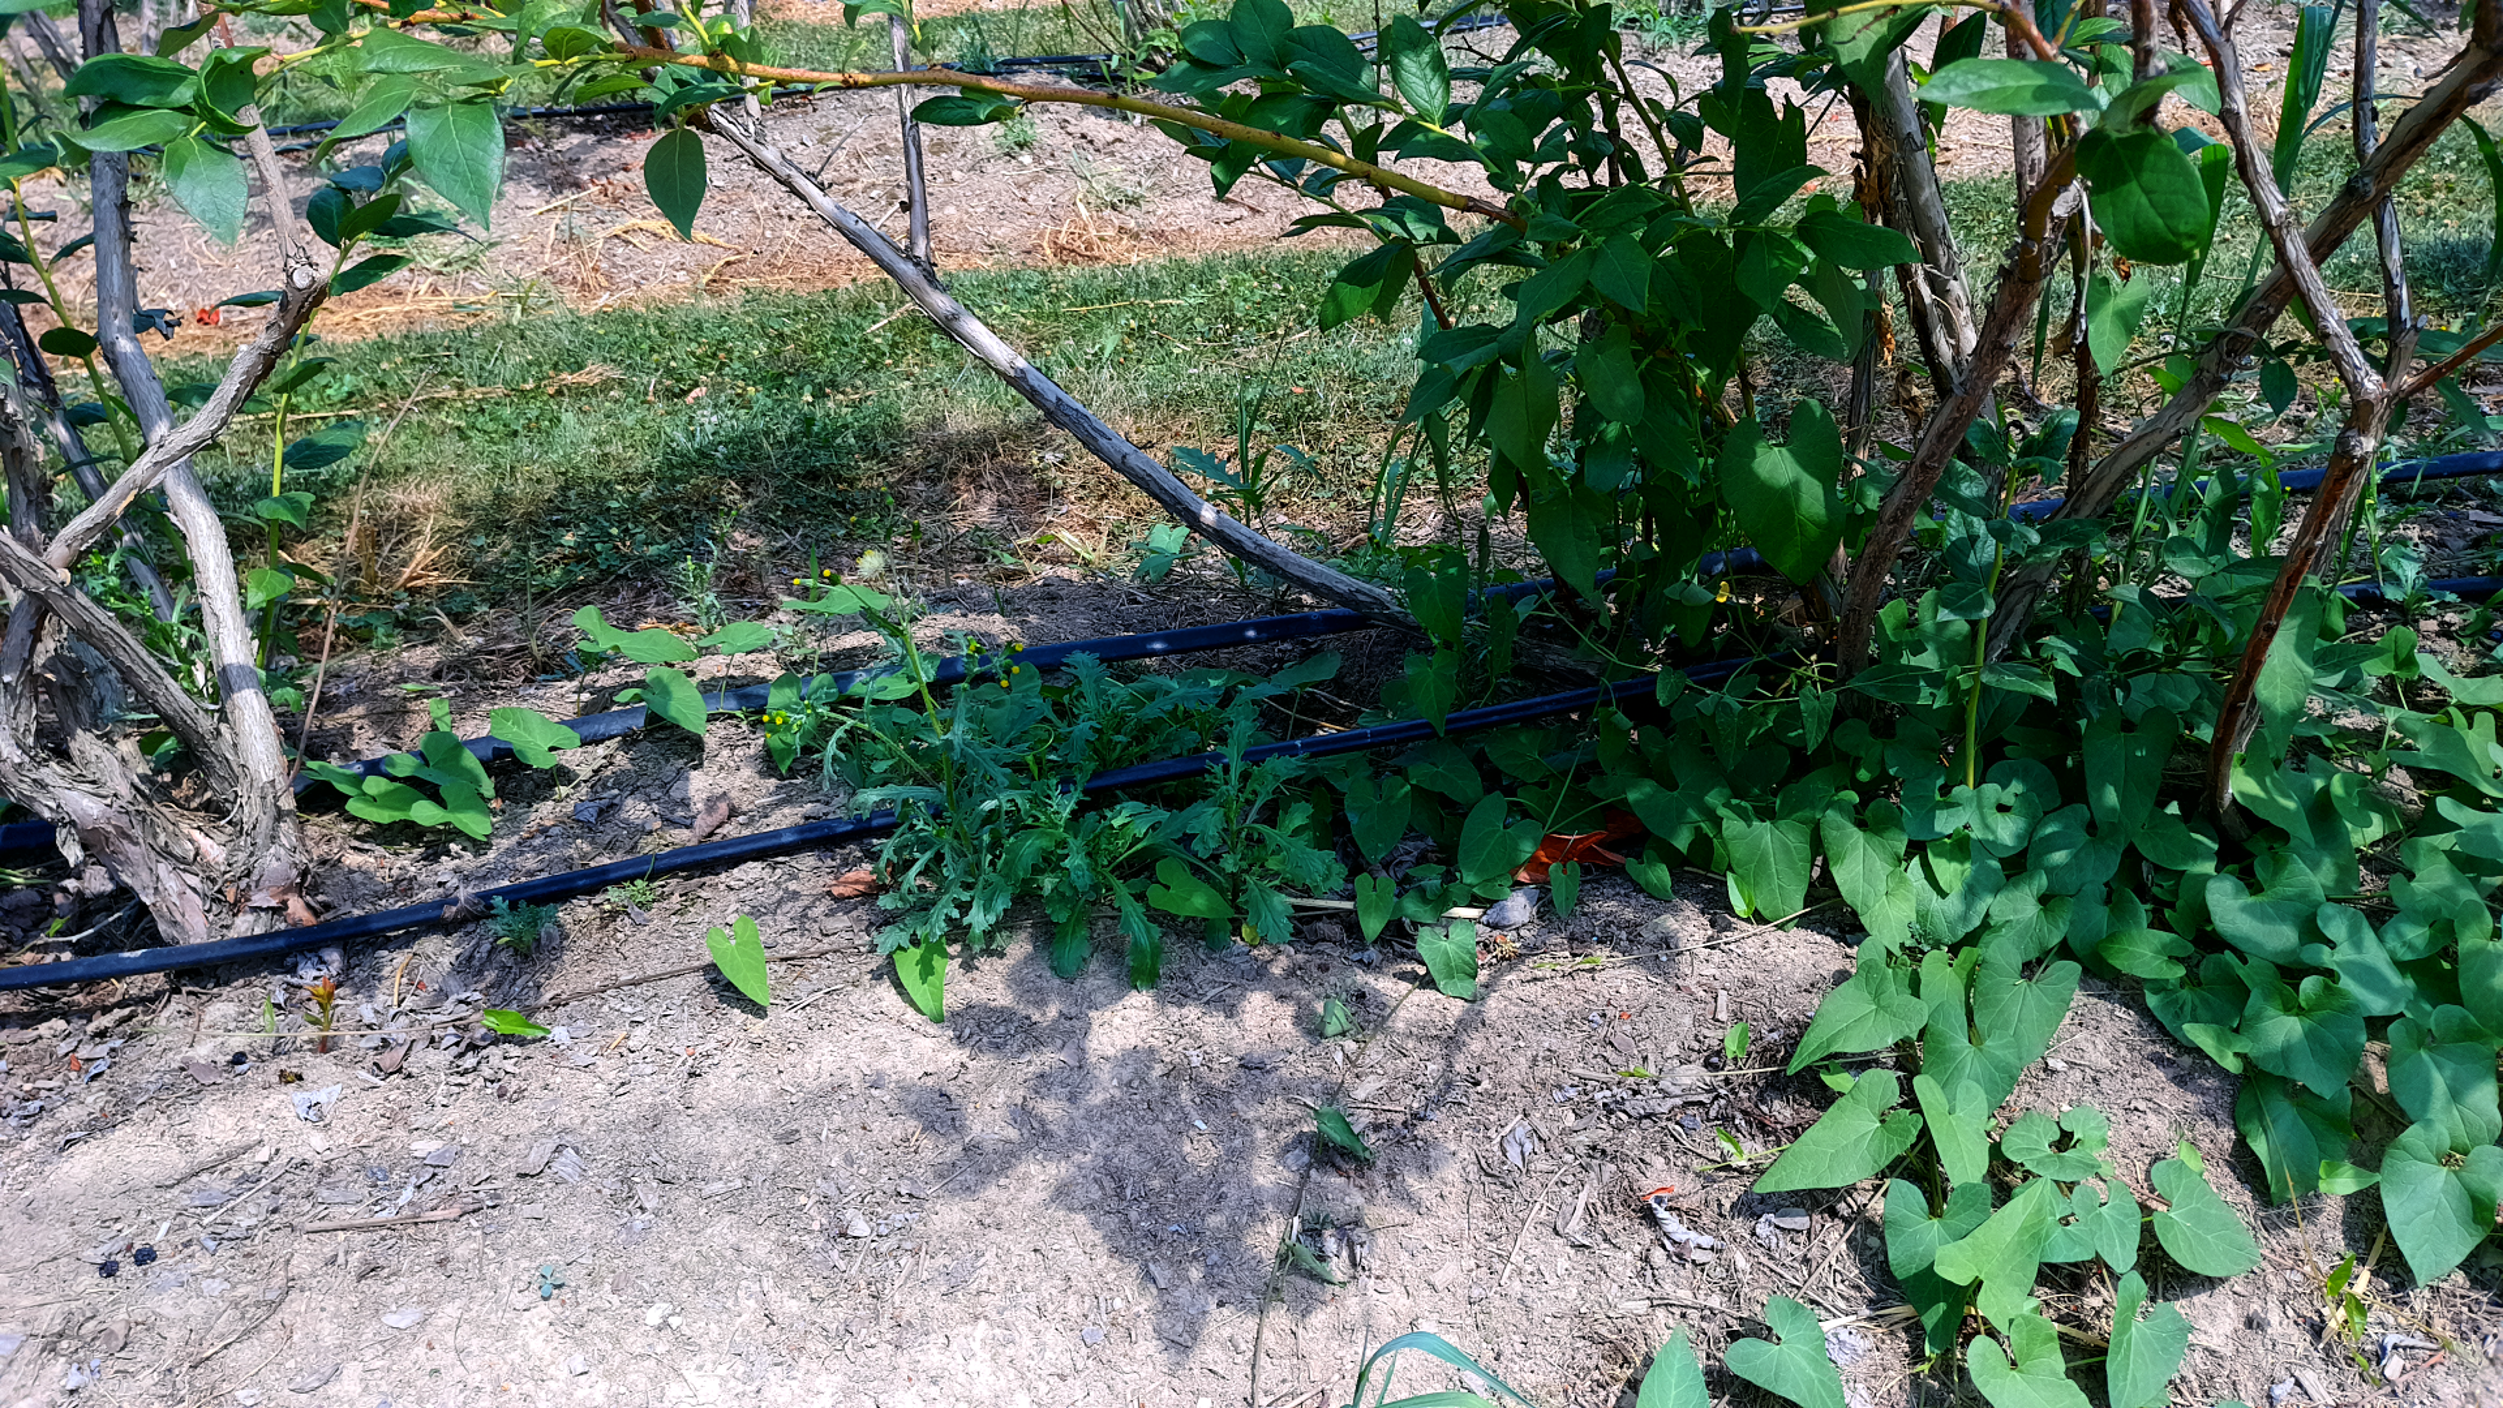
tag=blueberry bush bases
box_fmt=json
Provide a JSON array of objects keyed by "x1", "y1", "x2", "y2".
[
  {"x1": 1515, "y1": 335, "x2": 2405, "y2": 949},
  {"x1": 0, "y1": 472, "x2": 372, "y2": 1068}
]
